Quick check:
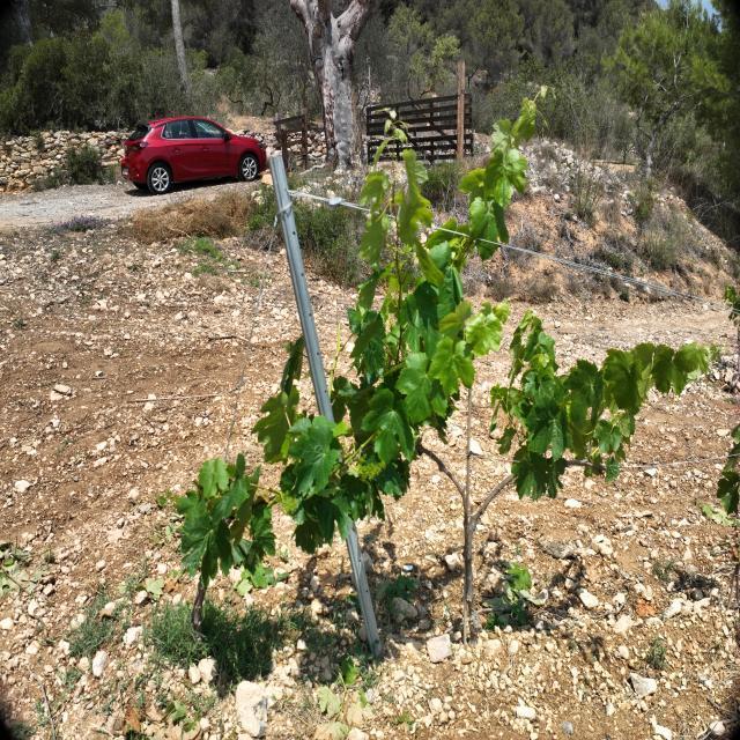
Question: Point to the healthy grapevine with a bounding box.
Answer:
[171,71,726,675]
